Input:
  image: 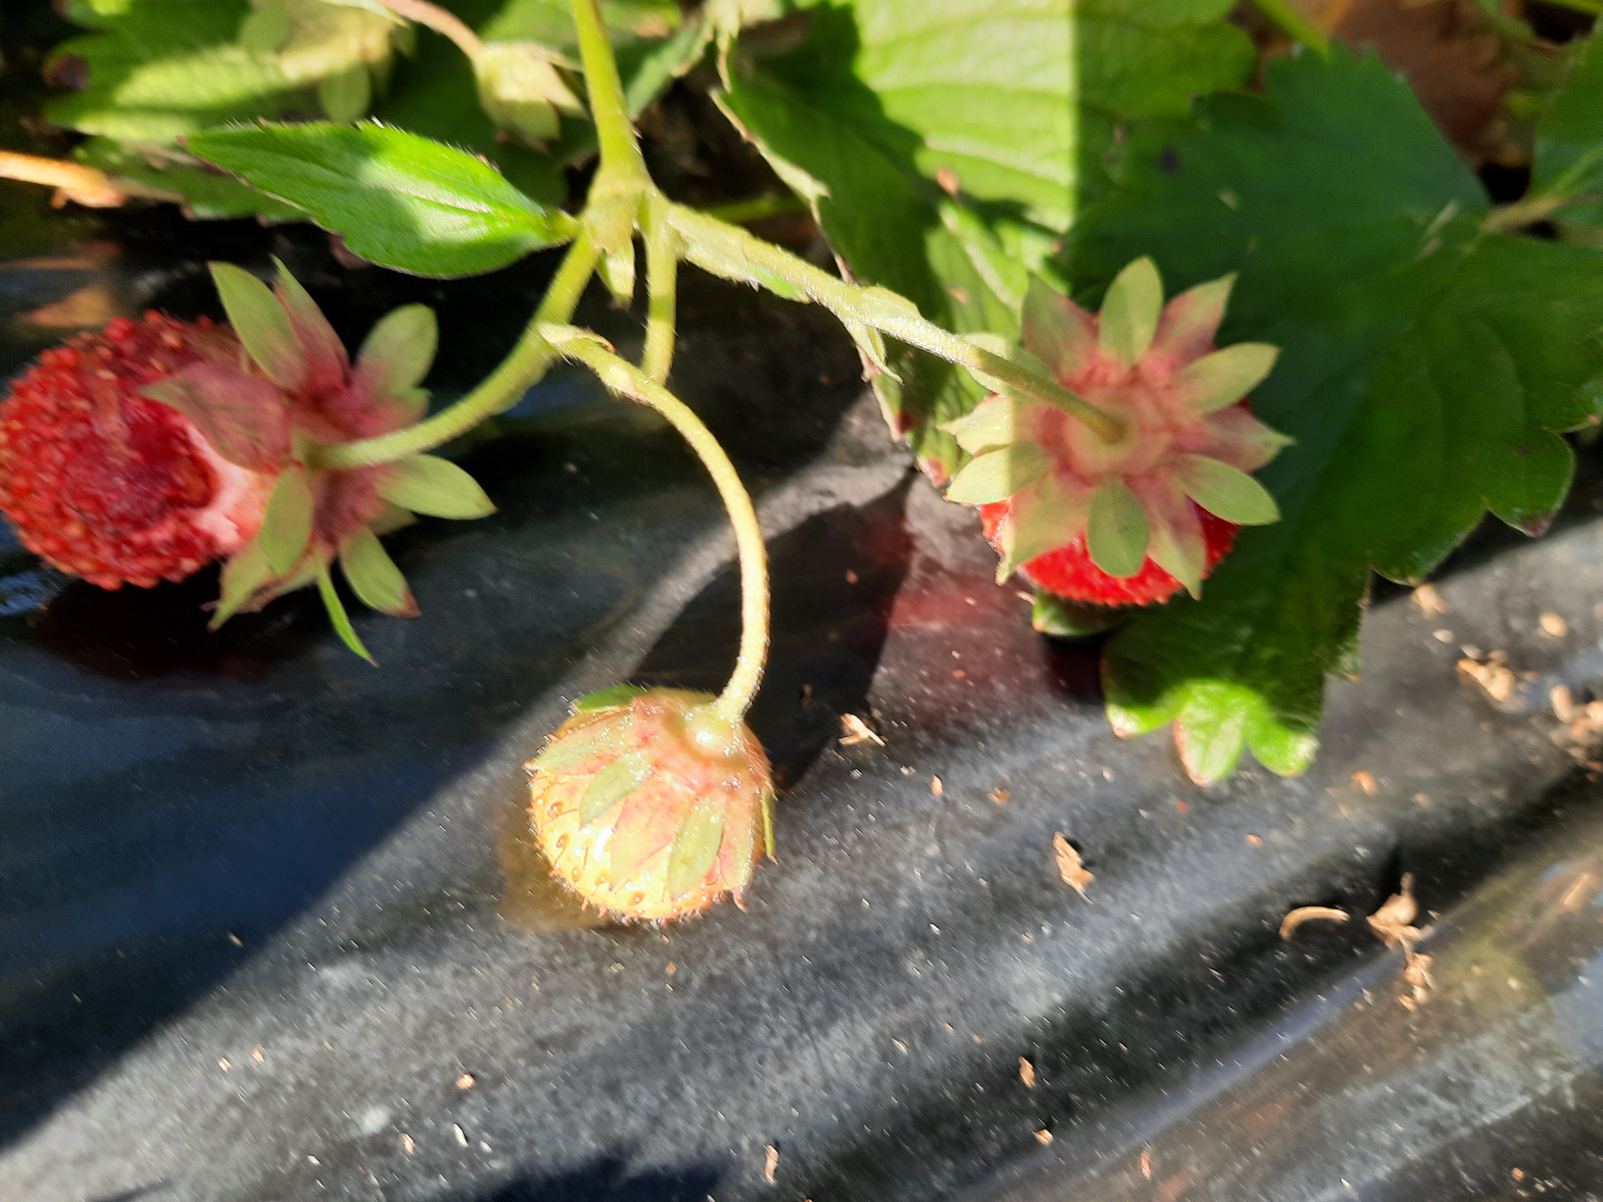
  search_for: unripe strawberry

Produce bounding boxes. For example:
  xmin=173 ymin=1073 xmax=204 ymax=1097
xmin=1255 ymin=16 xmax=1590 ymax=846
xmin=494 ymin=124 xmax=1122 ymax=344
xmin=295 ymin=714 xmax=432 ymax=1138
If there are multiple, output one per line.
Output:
xmin=528 ymin=700 xmax=781 ymax=920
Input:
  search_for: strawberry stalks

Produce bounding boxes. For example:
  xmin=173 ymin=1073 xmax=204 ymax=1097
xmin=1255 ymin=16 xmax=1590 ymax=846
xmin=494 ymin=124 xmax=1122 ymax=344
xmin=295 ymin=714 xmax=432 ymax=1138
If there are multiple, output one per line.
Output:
xmin=254 ymin=312 xmax=552 ymax=489
xmin=883 ymin=306 xmax=1157 ymax=455
xmin=676 ymin=455 xmax=772 ymax=769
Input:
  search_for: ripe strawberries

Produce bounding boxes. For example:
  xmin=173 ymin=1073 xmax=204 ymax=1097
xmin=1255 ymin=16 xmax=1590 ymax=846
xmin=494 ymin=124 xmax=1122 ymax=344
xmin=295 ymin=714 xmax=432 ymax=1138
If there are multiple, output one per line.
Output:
xmin=0 ymin=326 xmax=323 ymax=586
xmin=982 ymin=340 xmax=1264 ymax=601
